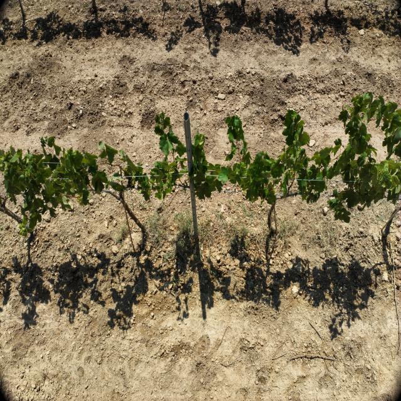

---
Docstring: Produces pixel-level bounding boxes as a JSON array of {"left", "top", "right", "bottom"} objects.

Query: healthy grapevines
[
  {"left": 60, "top": 142, "right": 182, "bottom": 249},
  {"left": 153, "top": 113, "right": 342, "bottom": 249},
  {"left": 0, "top": 135, "right": 59, "bottom": 267},
  {"left": 341, "top": 91, "right": 401, "bottom": 250}
]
